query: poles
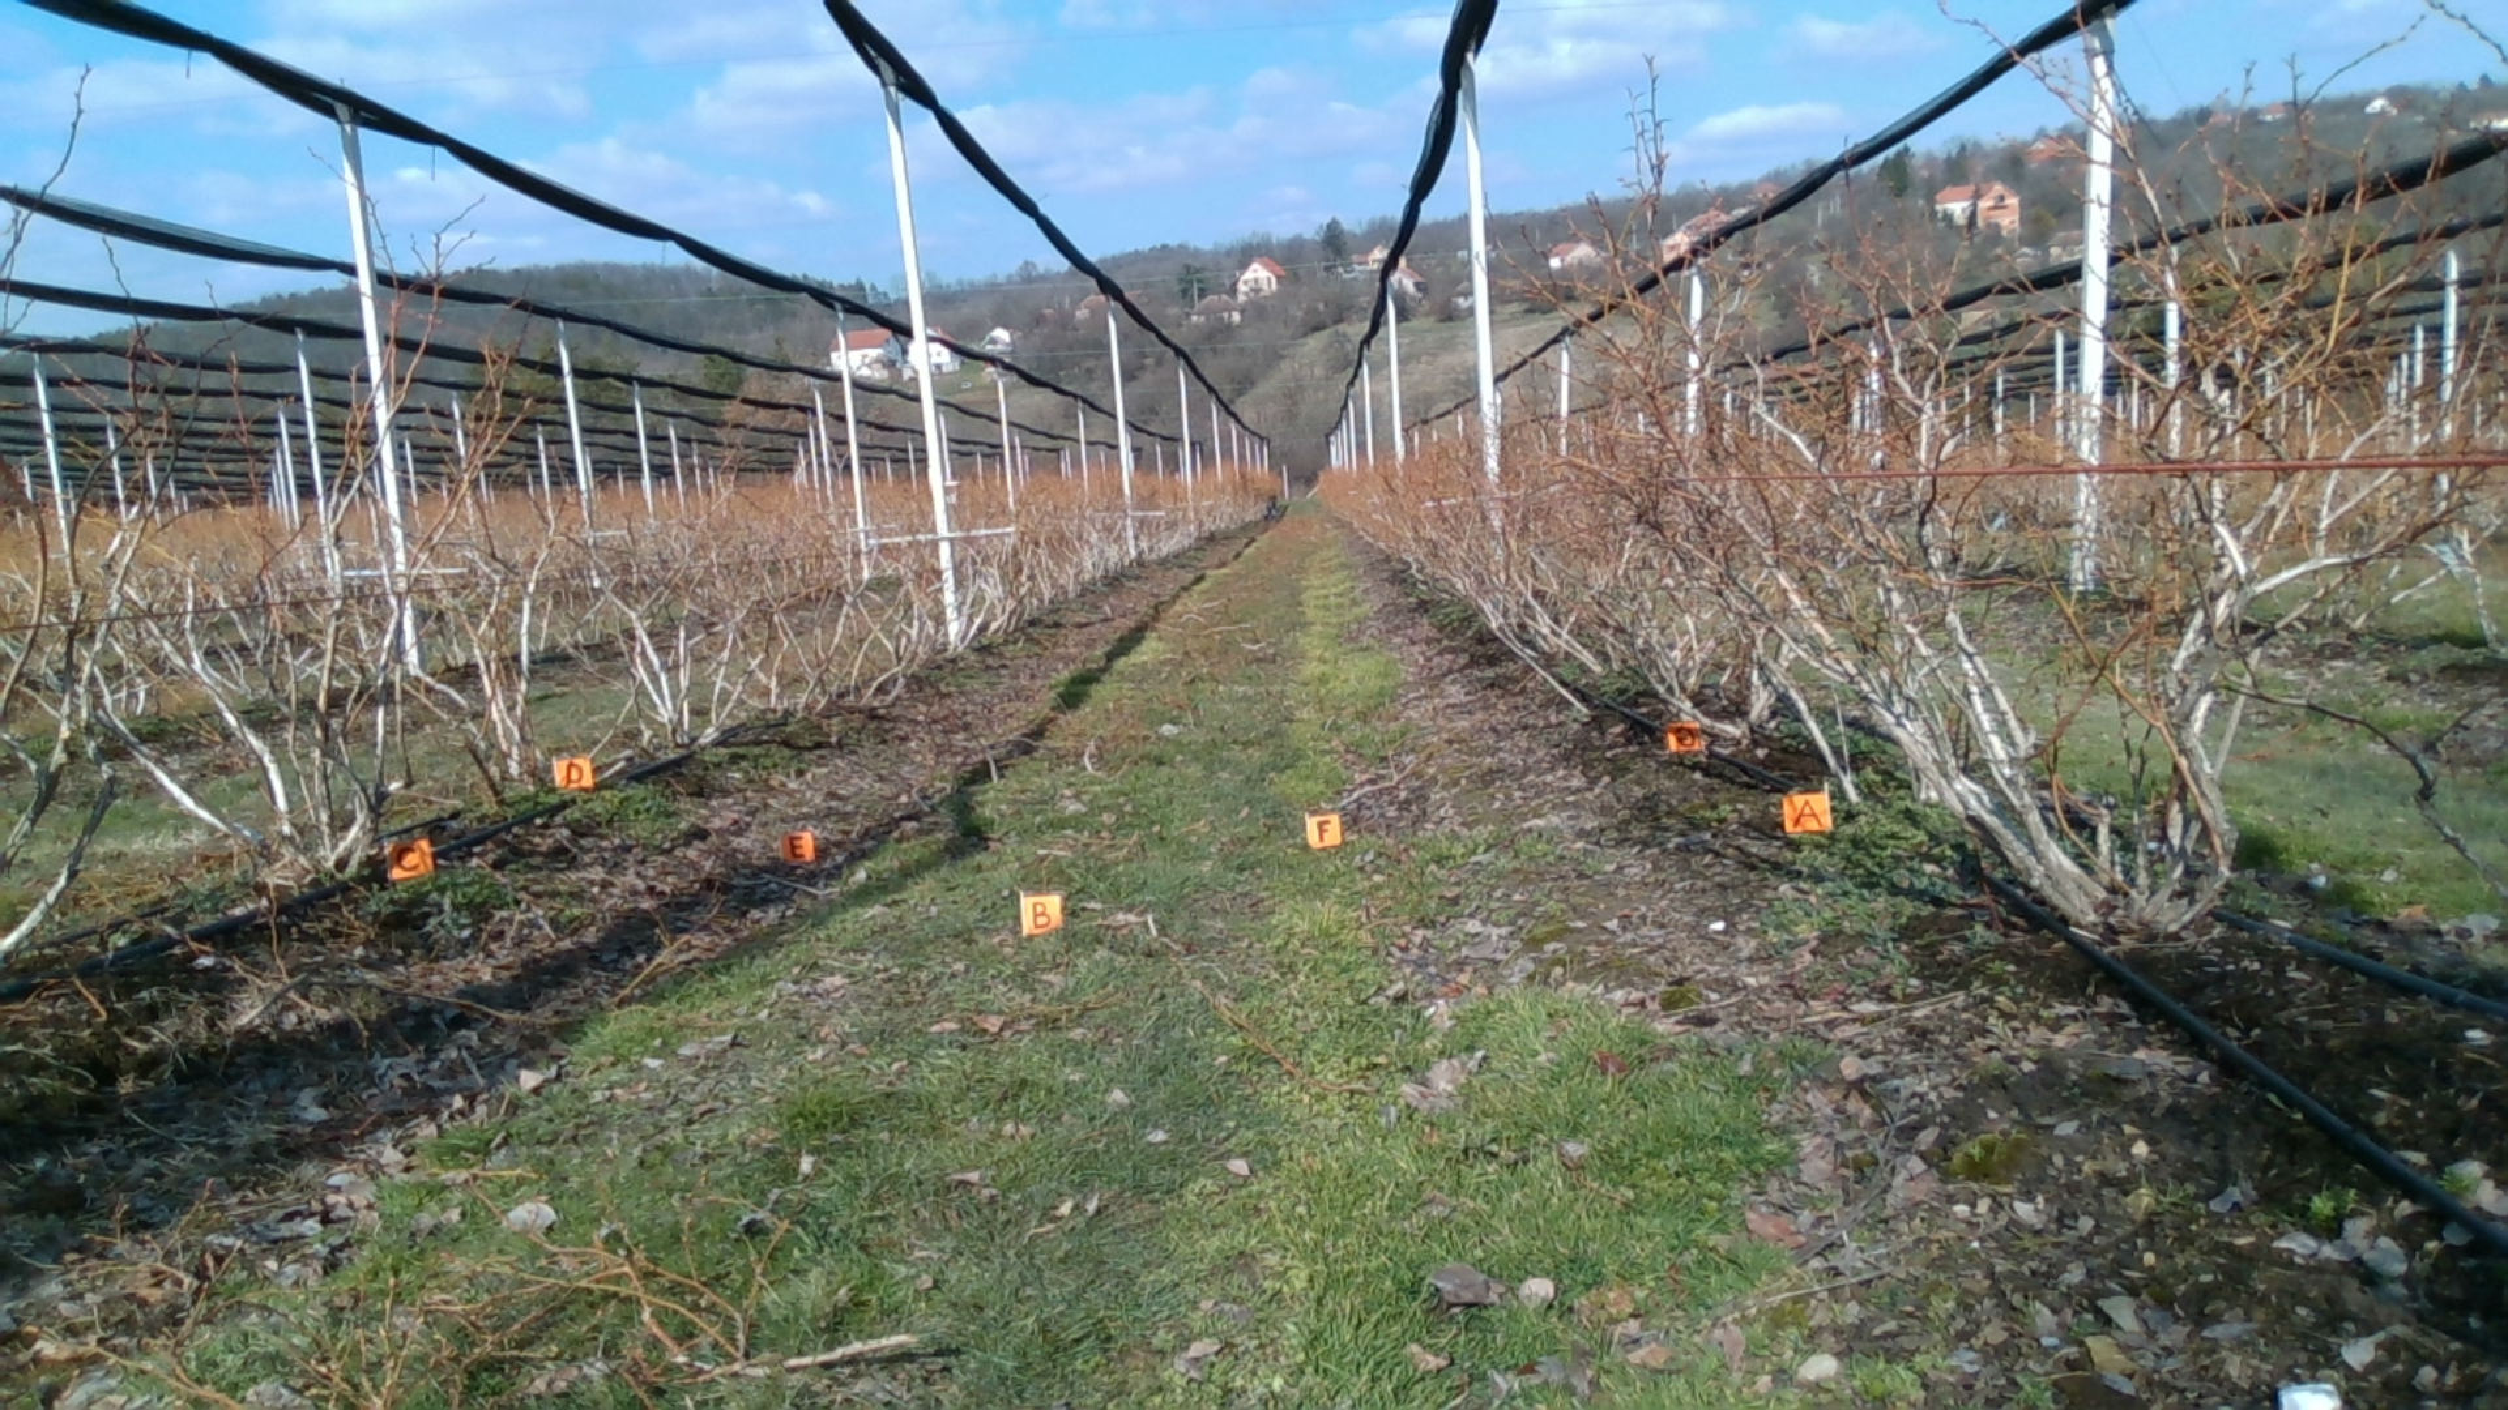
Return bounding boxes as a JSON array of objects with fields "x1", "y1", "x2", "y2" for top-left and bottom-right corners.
[
  {"x1": 1452, "y1": 52, "x2": 1521, "y2": 612},
  {"x1": 332, "y1": 111, "x2": 431, "y2": 684},
  {"x1": 2066, "y1": 32, "x2": 2110, "y2": 594},
  {"x1": 868, "y1": 59, "x2": 976, "y2": 659}
]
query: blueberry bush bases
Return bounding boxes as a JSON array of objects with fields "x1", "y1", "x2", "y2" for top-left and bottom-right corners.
[
  {"x1": 747, "y1": 650, "x2": 867, "y2": 745},
  {"x1": 203, "y1": 777, "x2": 410, "y2": 923},
  {"x1": 0, "y1": 838, "x2": 103, "y2": 1047},
  {"x1": 602, "y1": 665, "x2": 758, "y2": 777},
  {"x1": 1676, "y1": 667, "x2": 1801, "y2": 763},
  {"x1": 439, "y1": 711, "x2": 606, "y2": 827},
  {"x1": 1836, "y1": 692, "x2": 2011, "y2": 829},
  {"x1": 1982, "y1": 752, "x2": 2253, "y2": 974}
]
